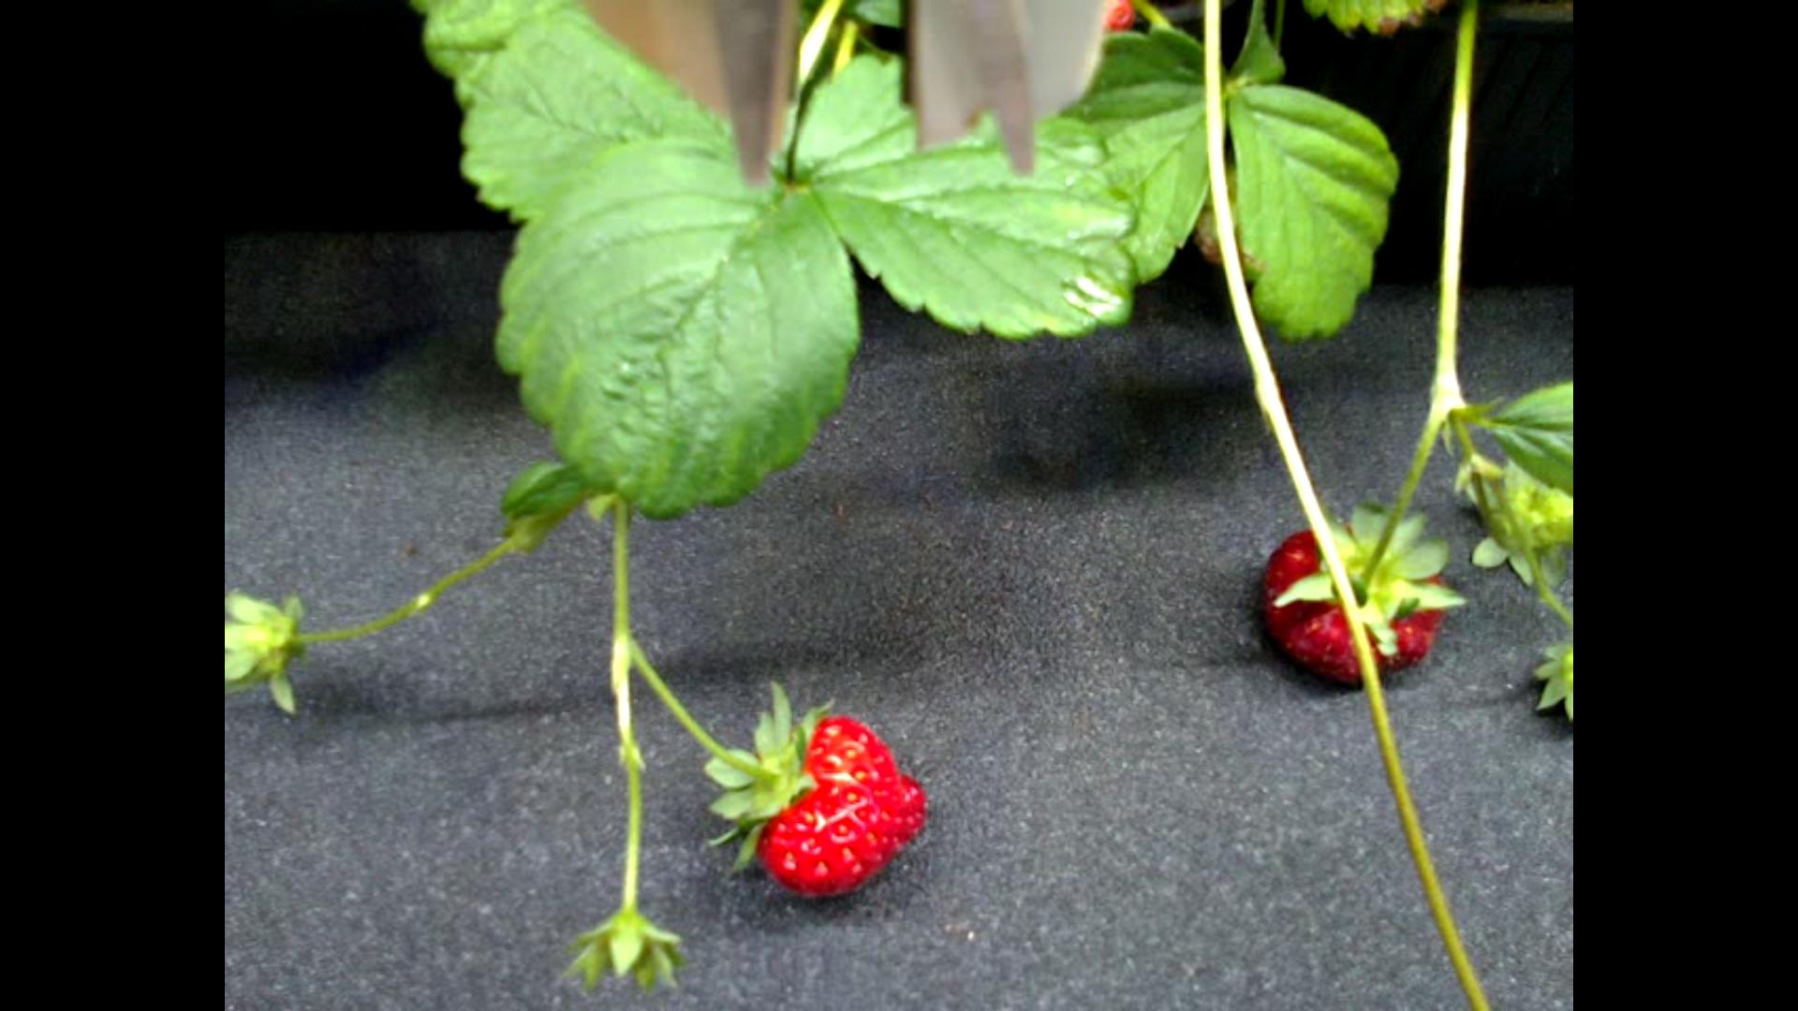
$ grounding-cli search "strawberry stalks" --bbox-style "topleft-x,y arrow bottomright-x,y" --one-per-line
636,661 -> 807,826
1335,424 -> 1443,615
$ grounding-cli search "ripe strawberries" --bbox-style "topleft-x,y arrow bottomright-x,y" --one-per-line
741,698 -> 952,908
1226,495 -> 1465,695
